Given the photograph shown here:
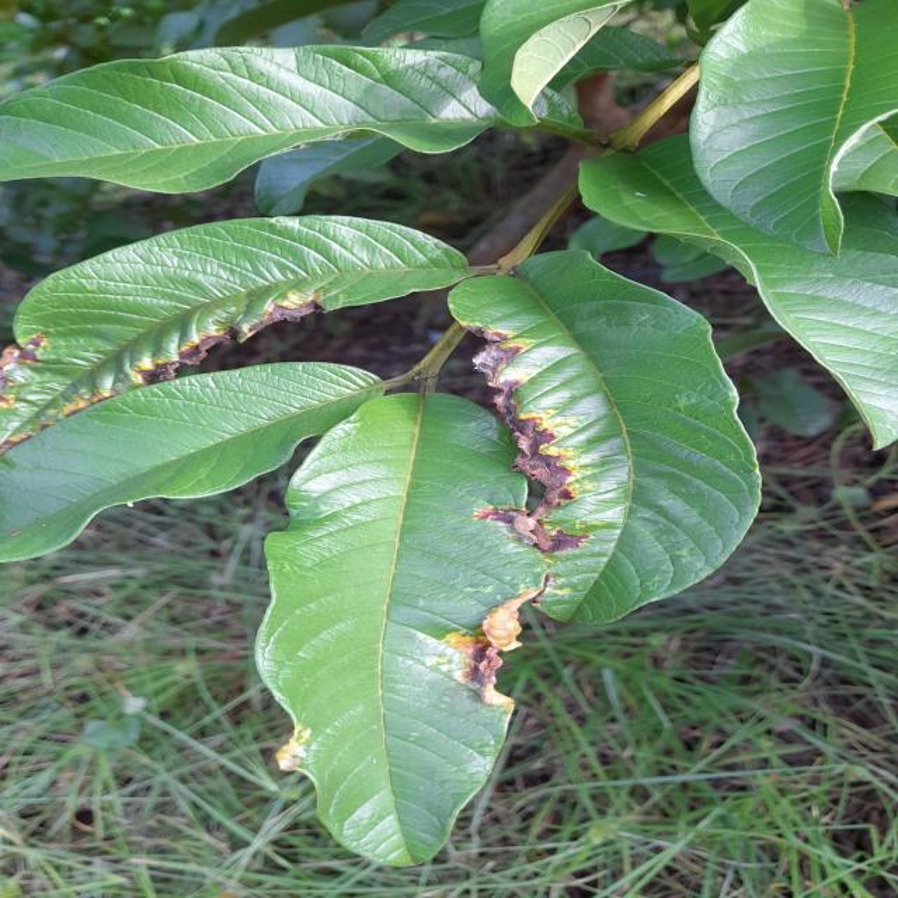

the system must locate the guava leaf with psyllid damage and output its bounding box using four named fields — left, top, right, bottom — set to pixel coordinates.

left=248, top=372, right=581, bottom=878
